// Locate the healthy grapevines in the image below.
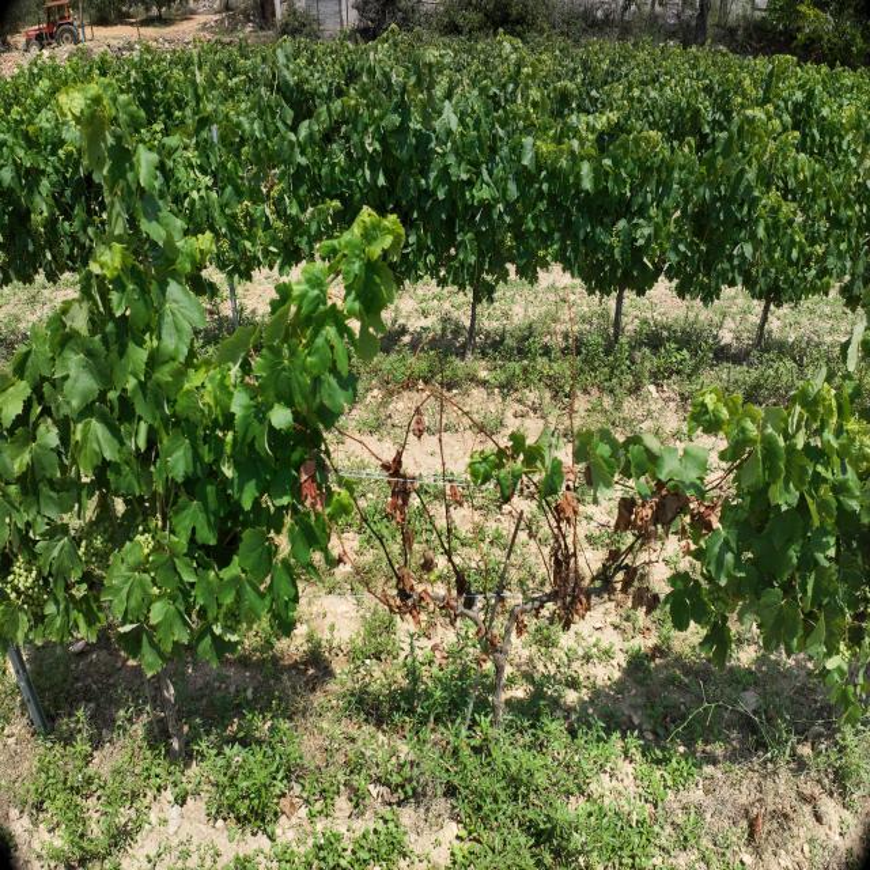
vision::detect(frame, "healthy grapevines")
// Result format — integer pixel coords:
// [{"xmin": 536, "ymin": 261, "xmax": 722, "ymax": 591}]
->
[
  {"xmin": 0, "ymin": 197, "xmax": 405, "ymax": 798},
  {"xmin": 682, "ymin": 376, "xmax": 870, "ymax": 771}
]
